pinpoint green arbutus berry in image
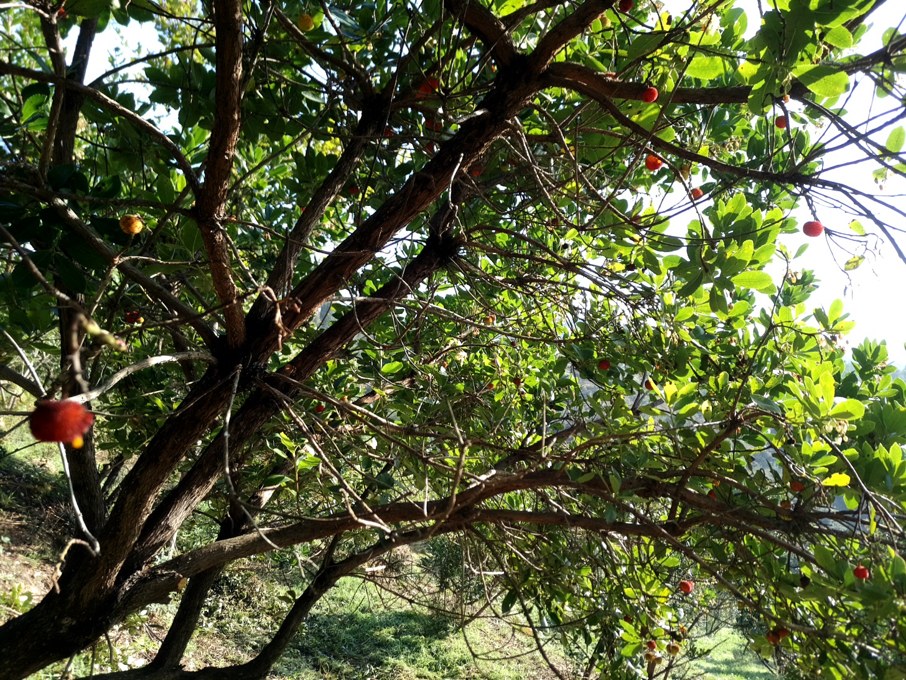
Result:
[676,169,689,183]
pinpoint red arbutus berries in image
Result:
[647,640,656,649]
[425,78,439,90]
[645,379,658,390]
[766,631,781,643]
[425,116,443,132]
[775,115,787,128]
[789,480,804,492]
[599,360,610,370]
[413,83,433,98]
[426,142,435,152]
[27,400,95,448]
[551,217,560,225]
[641,86,659,103]
[802,221,824,237]
[384,125,394,137]
[690,188,703,201]
[349,185,360,194]
[777,628,788,637]
[315,405,325,412]
[511,341,516,346]
[514,378,521,385]
[853,565,870,579]
[679,580,694,594]
[488,383,495,390]
[470,164,484,176]
[645,154,663,171]
[707,490,718,499]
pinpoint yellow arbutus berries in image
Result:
[483,316,493,326]
[666,643,680,656]
[298,14,313,30]
[119,214,143,234]
[780,499,792,510]
[644,652,655,662]
[655,657,662,664]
